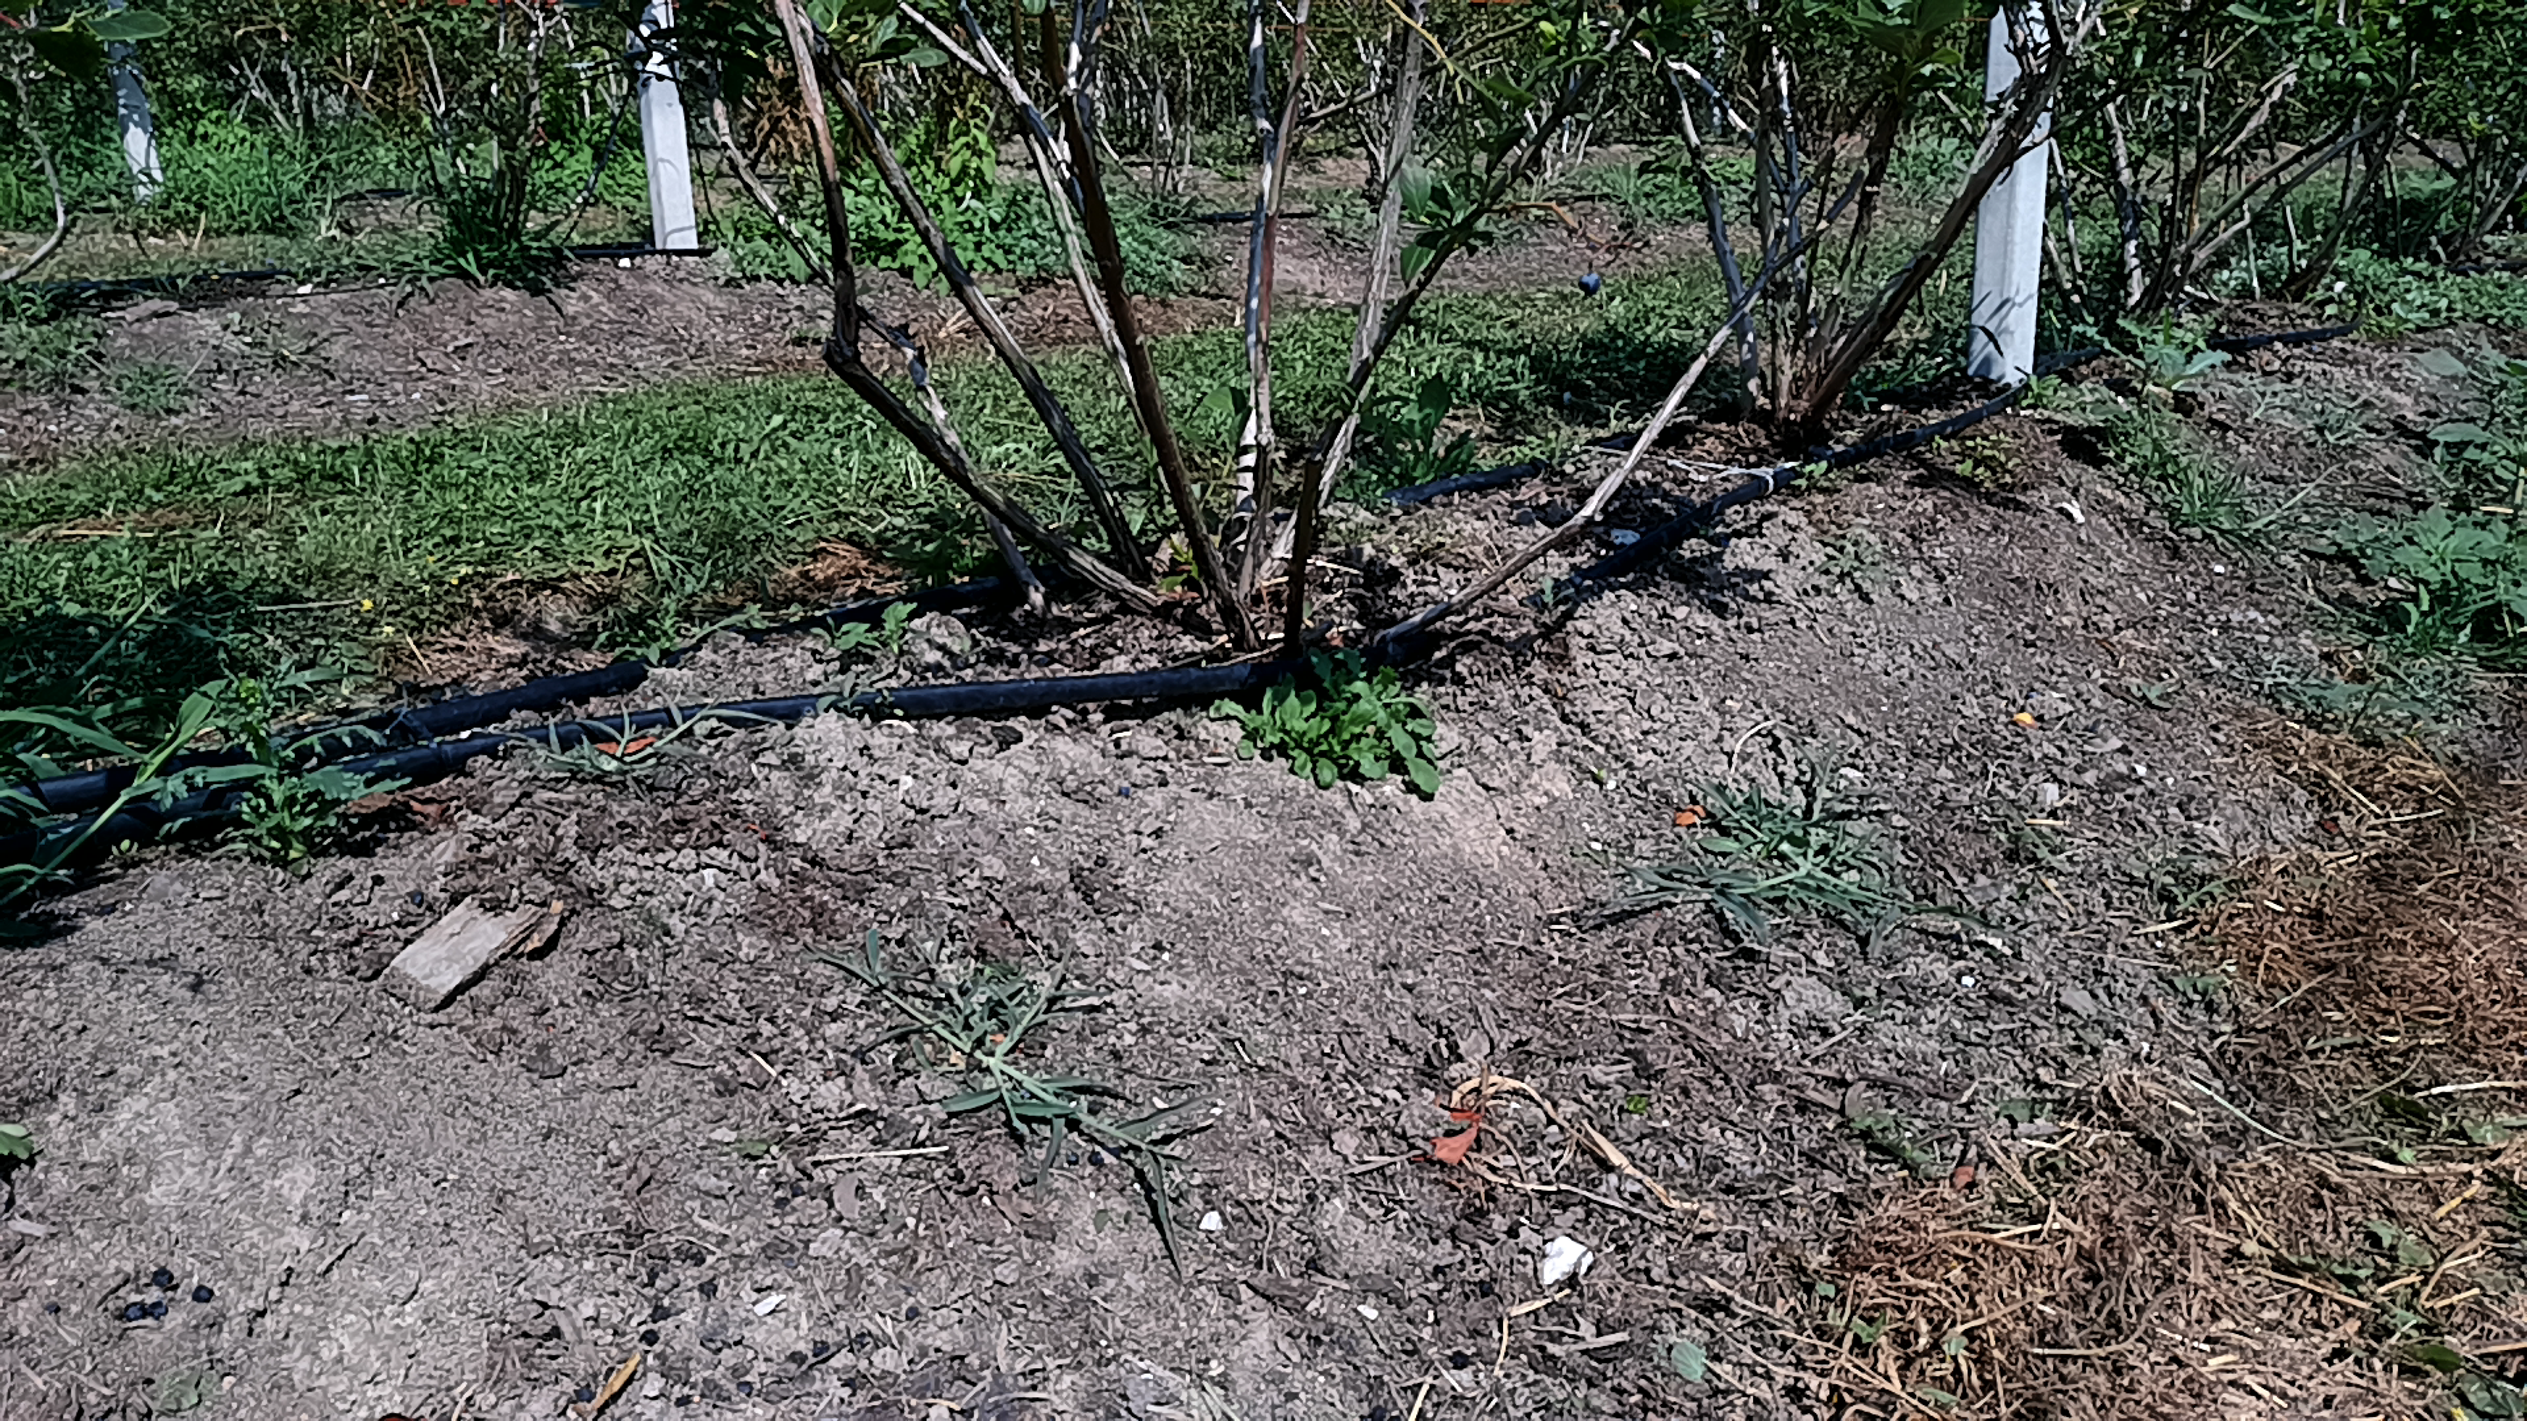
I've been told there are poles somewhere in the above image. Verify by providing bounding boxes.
[1943,18,2072,393]
[116,66,159,197]
[634,42,708,257]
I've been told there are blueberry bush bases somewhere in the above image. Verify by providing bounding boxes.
[408,159,566,287]
[2062,190,2255,373]
[1101,143,1211,239]
[2229,226,2357,345]
[1488,129,1595,213]
[911,372,1442,732]
[1672,226,1943,503]
[2371,189,2504,311]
